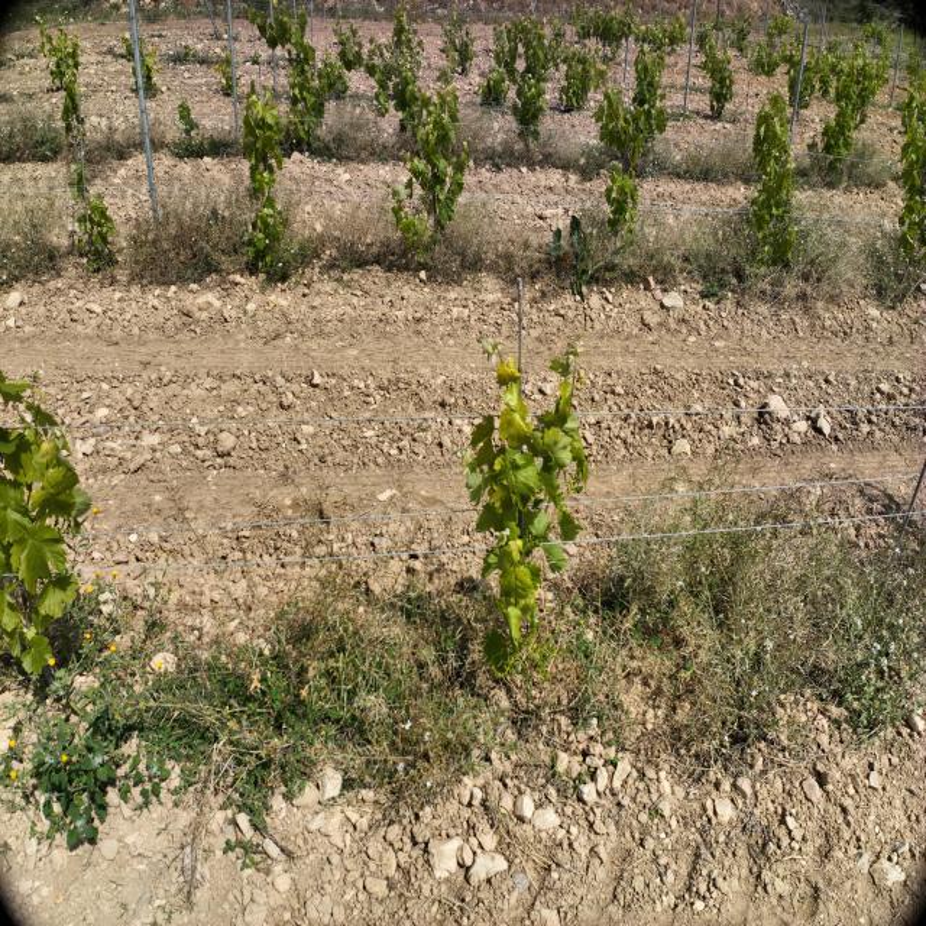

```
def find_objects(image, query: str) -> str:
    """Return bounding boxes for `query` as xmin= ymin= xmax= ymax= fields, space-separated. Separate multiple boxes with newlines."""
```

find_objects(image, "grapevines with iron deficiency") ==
xmin=453 ymin=333 xmax=598 ymax=657
xmin=0 ymin=354 xmax=95 ymax=699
